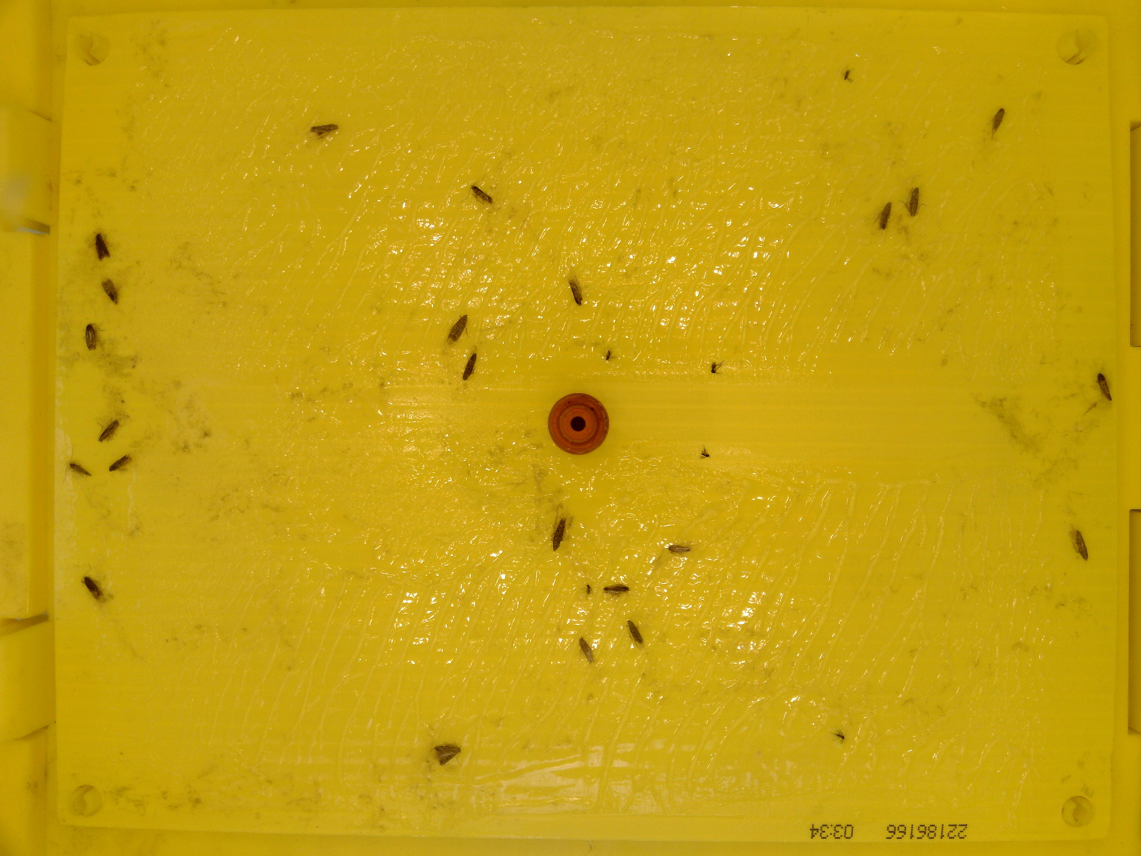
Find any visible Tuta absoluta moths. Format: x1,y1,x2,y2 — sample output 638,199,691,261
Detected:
1070,528,1088,560
461,351,477,380
433,743,460,765
990,107,1005,136
568,277,583,305
877,201,891,229
82,575,105,602
108,454,131,473
83,322,98,350
905,186,919,216
98,418,119,442
625,619,644,647
578,637,595,664
550,517,569,551
68,460,91,477
469,184,493,204
1096,372,1111,401
667,542,691,556
100,277,119,304
94,232,110,260
309,123,338,138
603,584,629,598
446,314,467,344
